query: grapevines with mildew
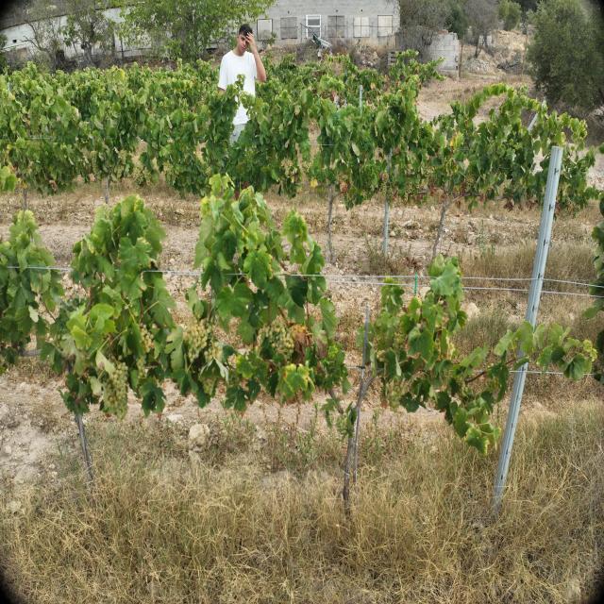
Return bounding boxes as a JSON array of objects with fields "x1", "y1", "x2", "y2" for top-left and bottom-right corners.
[
  {"x1": 0, "y1": 194, "x2": 181, "y2": 512},
  {"x1": 186, "y1": 210, "x2": 521, "y2": 548}
]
